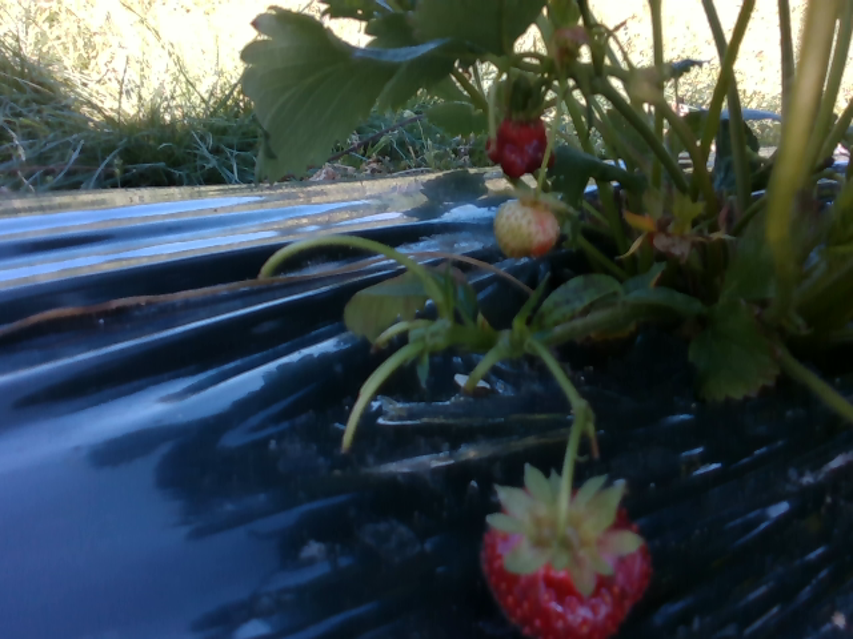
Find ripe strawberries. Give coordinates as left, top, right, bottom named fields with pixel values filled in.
left=481, top=495, right=655, bottom=638
left=485, top=117, right=550, bottom=176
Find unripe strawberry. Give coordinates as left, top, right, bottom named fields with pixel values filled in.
left=494, top=196, right=559, bottom=256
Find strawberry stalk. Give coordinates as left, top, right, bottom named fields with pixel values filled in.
left=551, top=411, right=587, bottom=557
